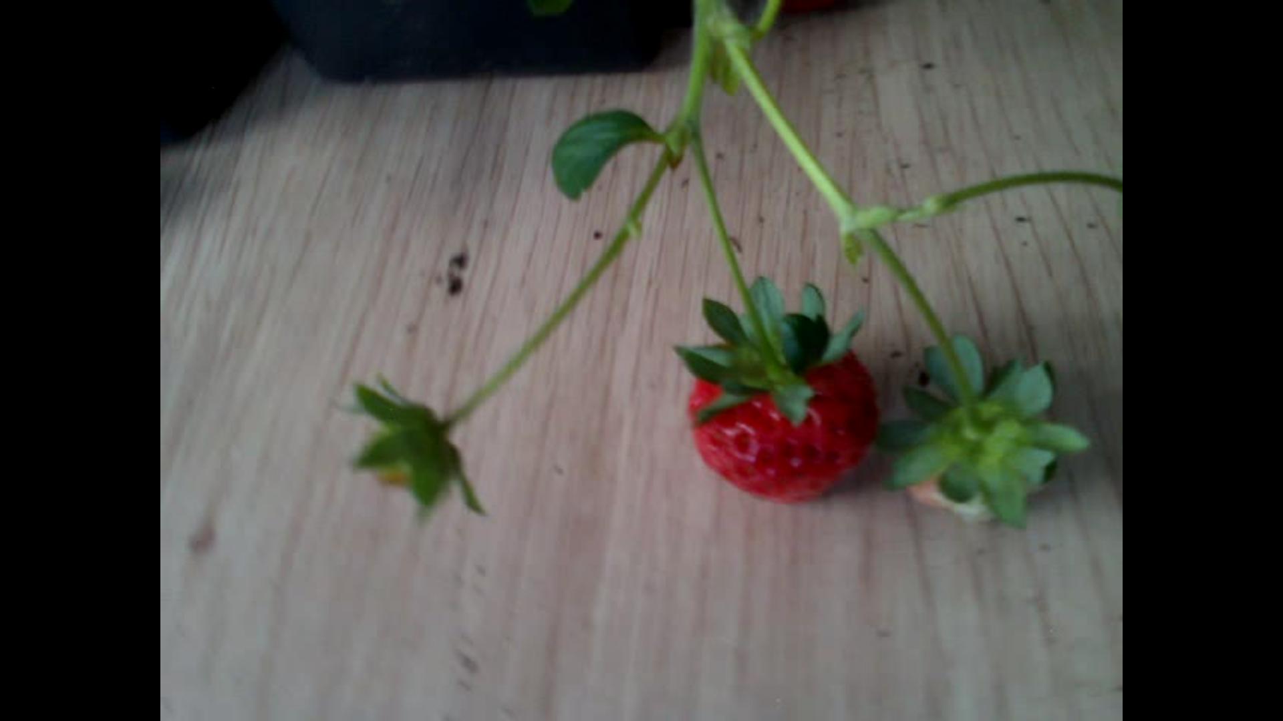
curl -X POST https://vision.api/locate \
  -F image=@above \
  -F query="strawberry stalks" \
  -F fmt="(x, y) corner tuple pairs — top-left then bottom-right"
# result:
(408, 349), (562, 436)
(921, 276), (1005, 441)
(704, 202), (792, 397)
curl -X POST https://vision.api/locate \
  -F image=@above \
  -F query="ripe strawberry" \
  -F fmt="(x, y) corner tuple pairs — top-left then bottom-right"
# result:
(692, 305), (884, 496)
